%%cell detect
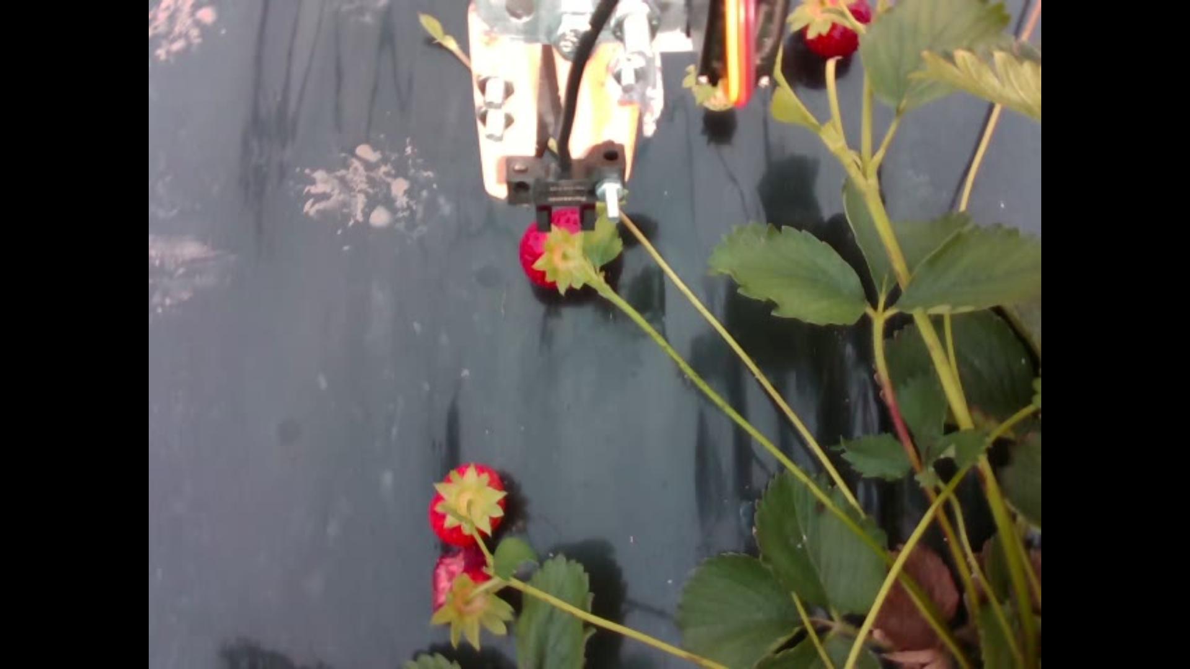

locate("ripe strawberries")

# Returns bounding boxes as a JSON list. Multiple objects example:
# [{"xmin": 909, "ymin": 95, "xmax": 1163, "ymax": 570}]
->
[
  {"xmin": 517, "ymin": 199, "xmax": 608, "ymax": 302},
  {"xmin": 791, "ymin": 1, "xmax": 883, "ymax": 57},
  {"xmin": 427, "ymin": 466, "xmax": 506, "ymax": 544},
  {"xmin": 430, "ymin": 555, "xmax": 500, "ymax": 616}
]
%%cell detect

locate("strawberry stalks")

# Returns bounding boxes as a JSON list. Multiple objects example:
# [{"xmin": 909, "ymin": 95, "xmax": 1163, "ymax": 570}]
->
[
  {"xmin": 550, "ymin": 246, "xmax": 641, "ymax": 328},
  {"xmin": 812, "ymin": 0, "xmax": 872, "ymax": 35},
  {"xmin": 453, "ymin": 566, "xmax": 526, "ymax": 609},
  {"xmin": 447, "ymin": 506, "xmax": 501, "ymax": 569}
]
